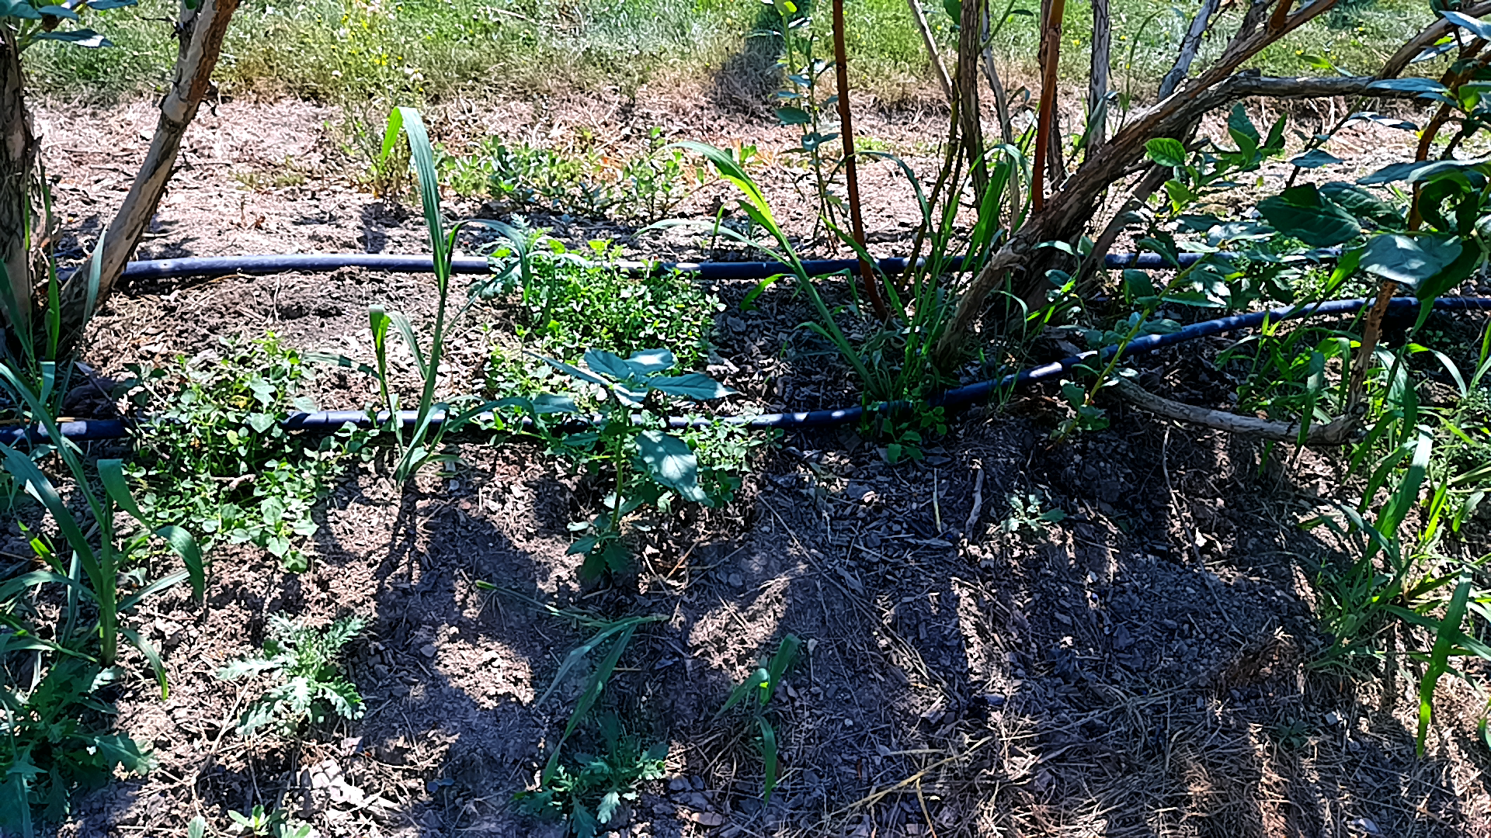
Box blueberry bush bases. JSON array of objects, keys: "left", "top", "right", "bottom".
[
  {"left": 0, "top": 156, "right": 212, "bottom": 486},
  {"left": 749, "top": 102, "right": 1259, "bottom": 514}
]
